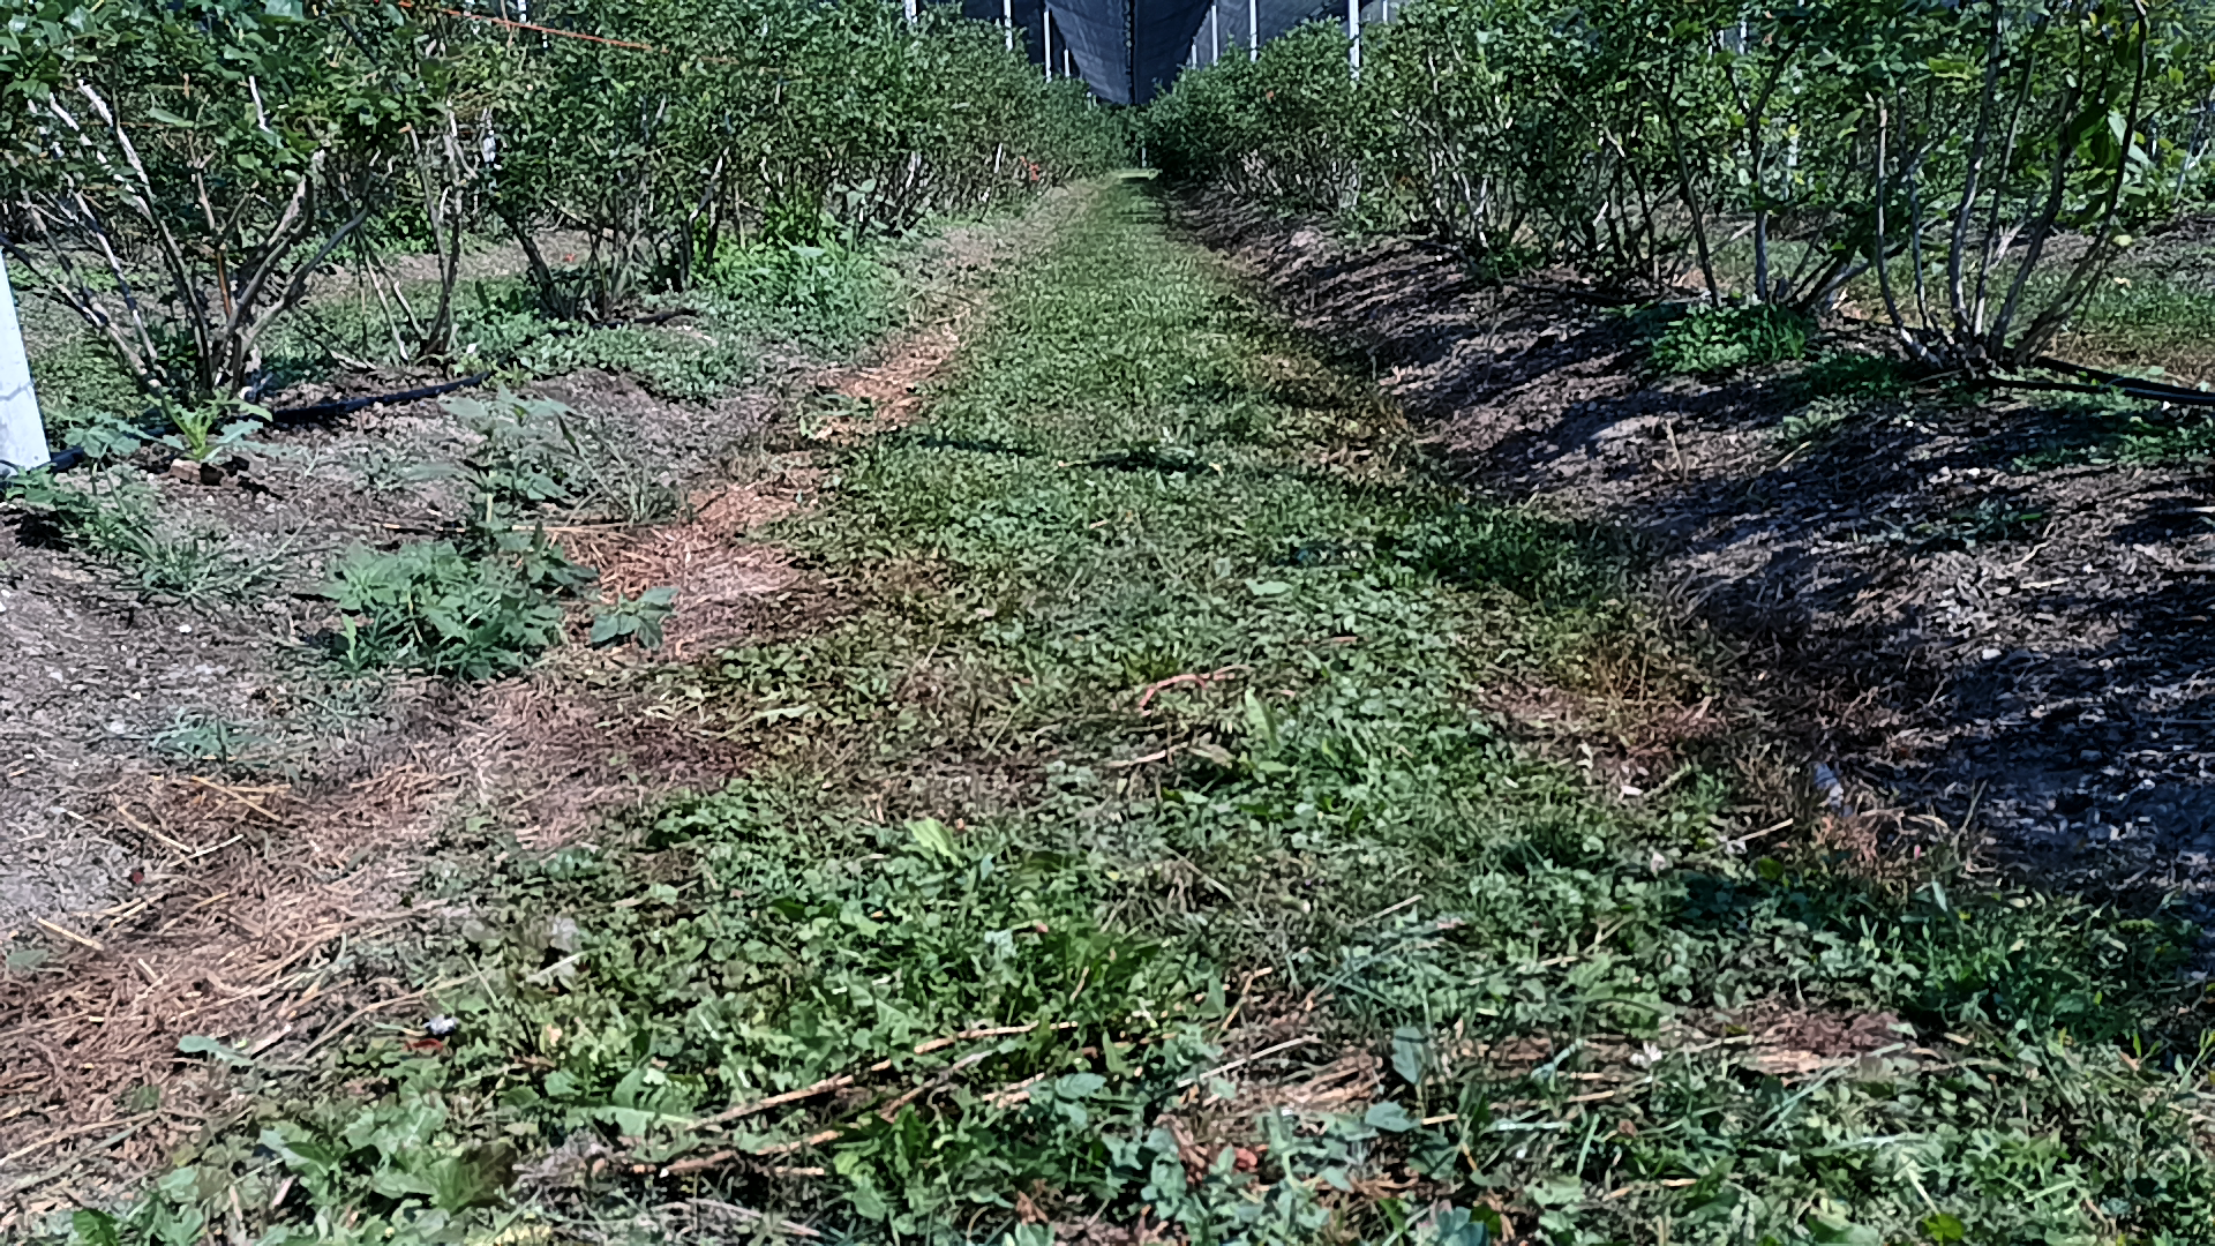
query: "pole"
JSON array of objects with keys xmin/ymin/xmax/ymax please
[{"xmin": 2, "ymin": 270, "xmax": 51, "ymax": 494}]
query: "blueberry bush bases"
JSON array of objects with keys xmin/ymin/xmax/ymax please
[
  {"xmin": 82, "ymin": 279, "xmax": 308, "ymax": 459},
  {"xmin": 1583, "ymin": 208, "xmax": 1669, "ymax": 308},
  {"xmin": 1419, "ymin": 185, "xmax": 1541, "ymax": 285},
  {"xmin": 521, "ymin": 245, "xmax": 700, "ymax": 367},
  {"xmin": 1688, "ymin": 233, "xmax": 1840, "ymax": 359},
  {"xmin": 1863, "ymin": 255, "xmax": 2112, "ymax": 425},
  {"xmin": 652, "ymin": 229, "xmax": 735, "ymax": 307},
  {"xmin": 326, "ymin": 293, "xmax": 507, "ymax": 407}
]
